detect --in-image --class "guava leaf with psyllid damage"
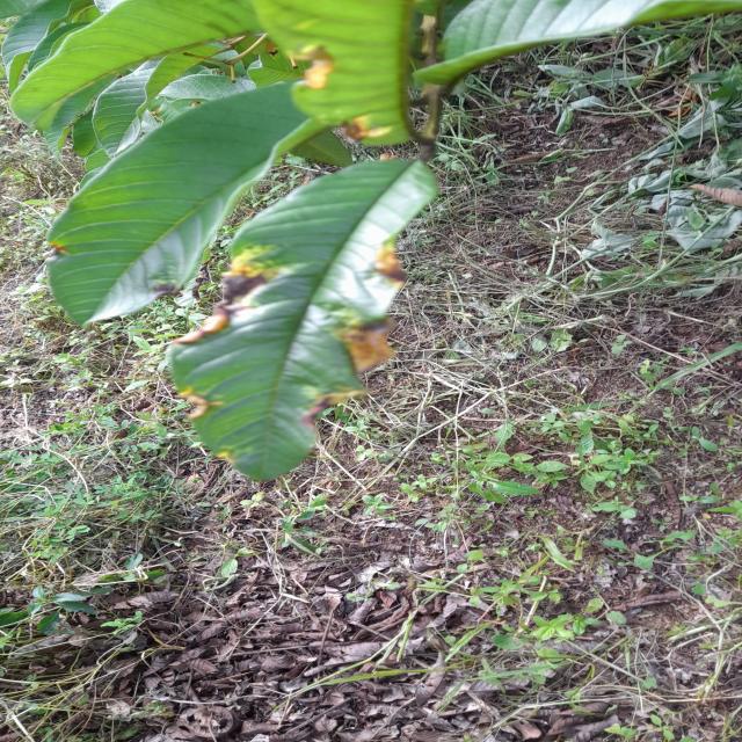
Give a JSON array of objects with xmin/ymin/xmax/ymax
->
[{"xmin": 155, "ymin": 157, "xmax": 453, "ymax": 496}]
